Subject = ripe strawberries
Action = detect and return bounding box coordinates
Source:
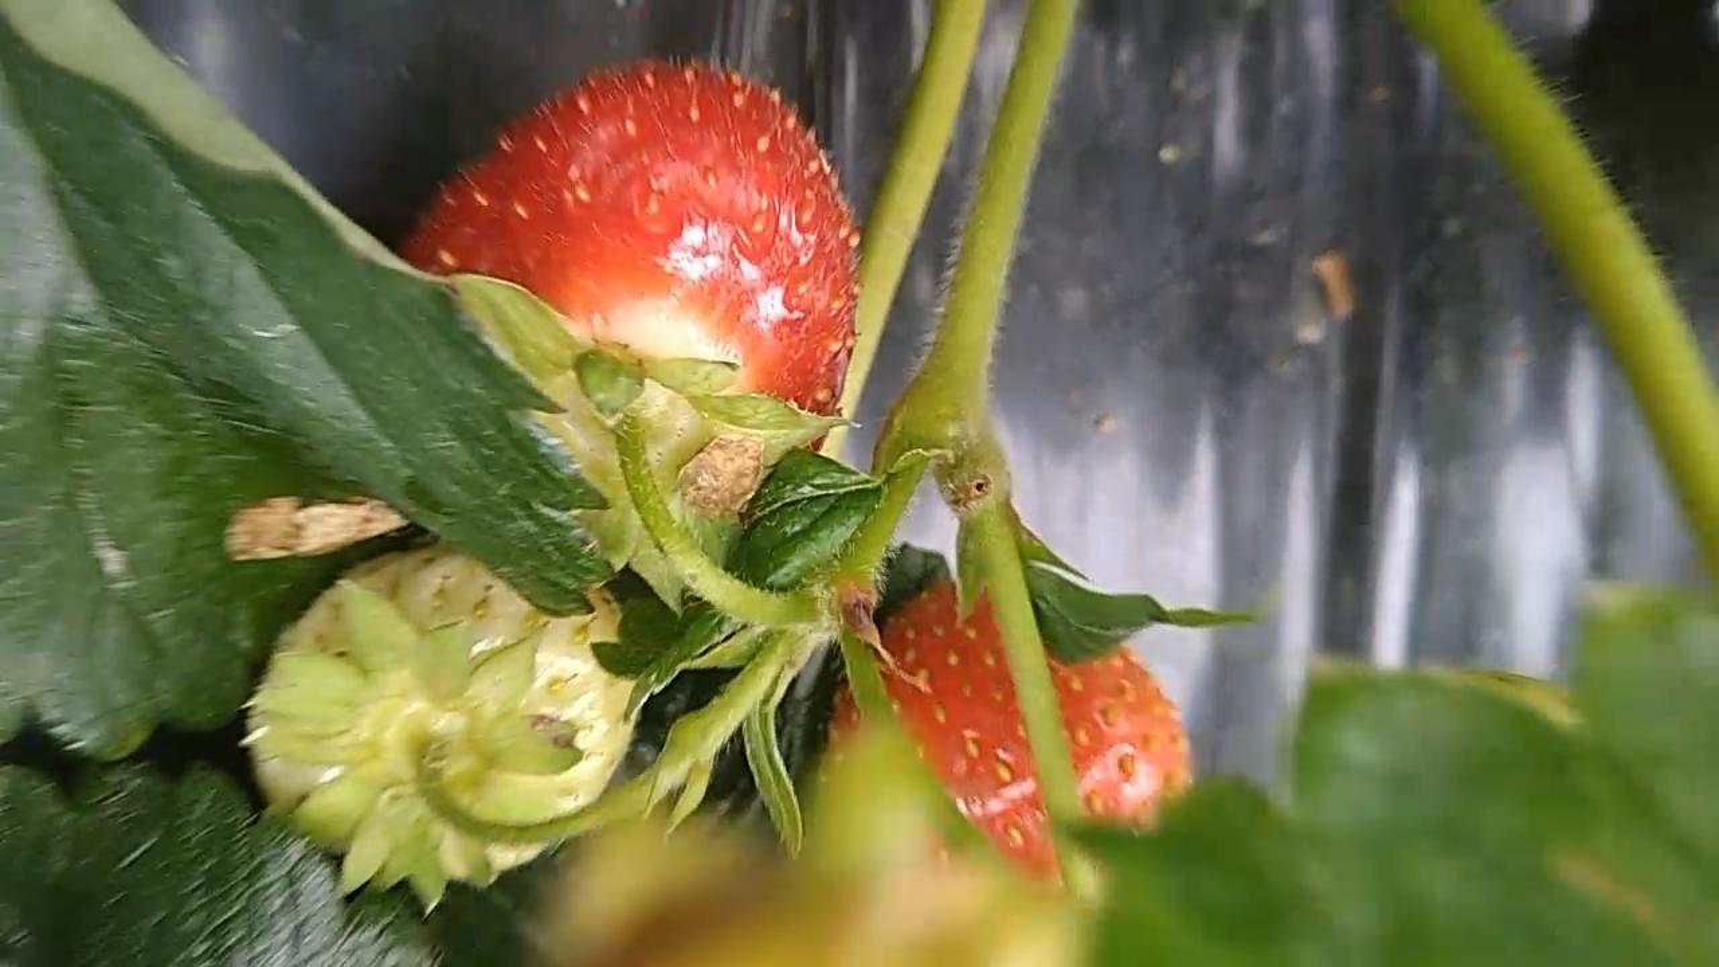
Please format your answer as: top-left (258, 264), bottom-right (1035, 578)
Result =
top-left (418, 42), bottom-right (907, 394)
top-left (808, 573), bottom-right (1172, 879)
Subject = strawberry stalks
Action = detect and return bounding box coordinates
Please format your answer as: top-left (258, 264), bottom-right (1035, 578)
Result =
top-left (532, 310), bottom-right (816, 636)
top-left (389, 713), bottom-right (664, 858)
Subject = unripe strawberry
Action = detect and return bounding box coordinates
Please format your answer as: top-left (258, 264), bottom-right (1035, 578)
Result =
top-left (240, 533), bottom-right (659, 892)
